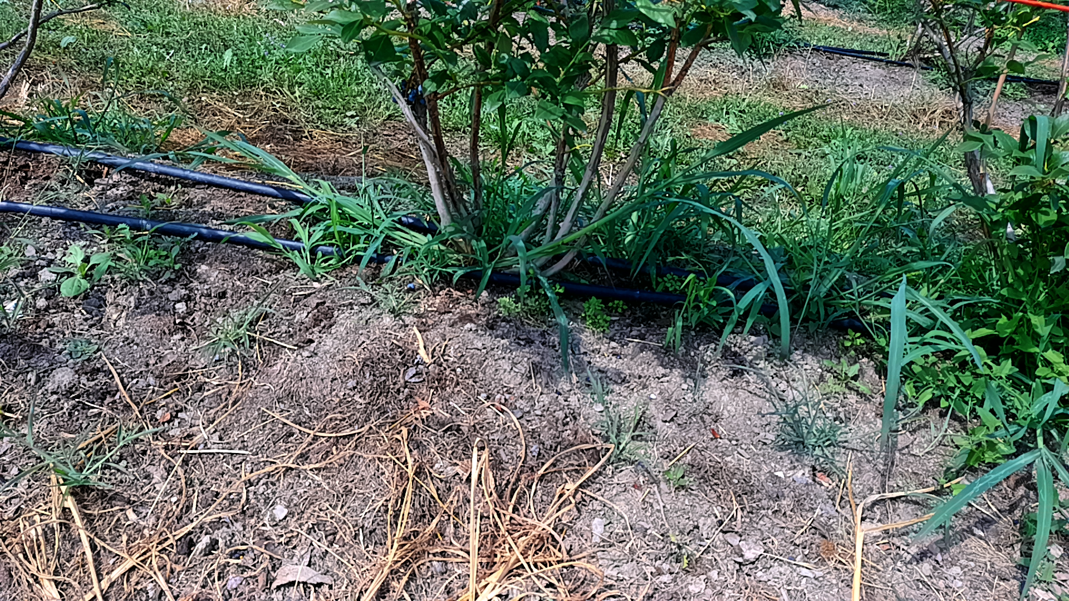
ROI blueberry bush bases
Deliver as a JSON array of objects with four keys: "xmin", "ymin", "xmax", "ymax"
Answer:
[
  {"xmin": 931, "ymin": 104, "xmax": 1069, "ymax": 358},
  {"xmin": 396, "ymin": 127, "xmax": 668, "ymax": 319},
  {"xmin": 889, "ymin": 31, "xmax": 948, "ymax": 71}
]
